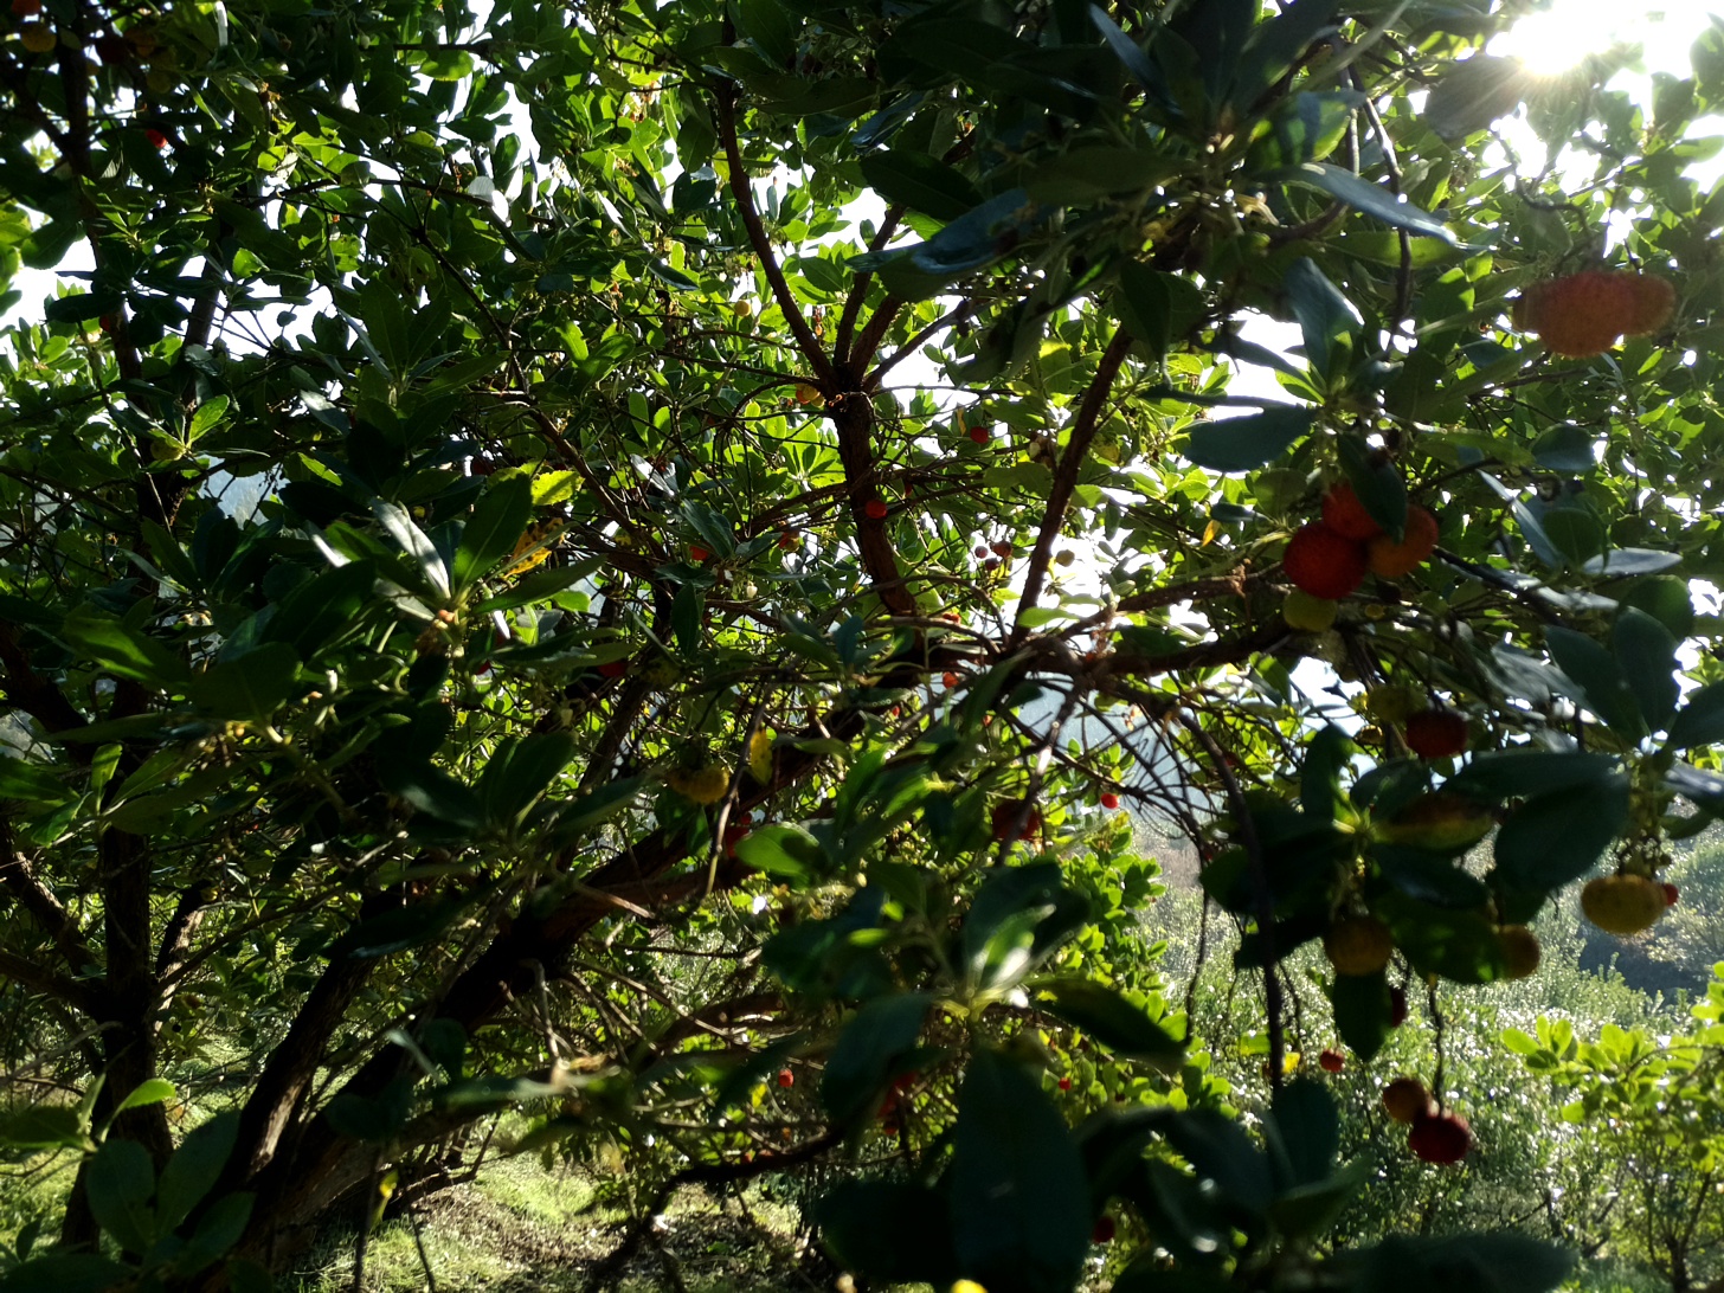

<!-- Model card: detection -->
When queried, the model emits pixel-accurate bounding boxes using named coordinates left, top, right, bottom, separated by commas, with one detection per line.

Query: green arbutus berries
left=1285, top=587, right=1337, bottom=638
left=1584, top=872, right=1667, bottom=937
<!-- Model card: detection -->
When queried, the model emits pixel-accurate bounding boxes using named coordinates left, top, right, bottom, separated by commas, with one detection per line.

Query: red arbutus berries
left=971, top=426, right=989, bottom=444
left=599, top=656, right=629, bottom=678
left=144, top=123, right=169, bottom=148
left=1407, top=706, right=1465, bottom=763
left=985, top=559, right=998, bottom=569
left=991, top=797, right=1038, bottom=839
left=975, top=546, right=987, bottom=558
left=865, top=500, right=887, bottom=518
left=942, top=670, right=963, bottom=690
left=1282, top=518, right=1365, bottom=598
left=777, top=1071, right=793, bottom=1088
left=1369, top=497, right=1437, bottom=579
left=1101, top=792, right=1119, bottom=808
left=1321, top=479, right=1375, bottom=537
left=796, top=389, right=809, bottom=404
left=688, top=541, right=711, bottom=560
left=1320, top=1048, right=1344, bottom=1073
left=1058, top=1077, right=1071, bottom=1091
left=997, top=541, right=1011, bottom=557
left=1407, top=1115, right=1470, bottom=1163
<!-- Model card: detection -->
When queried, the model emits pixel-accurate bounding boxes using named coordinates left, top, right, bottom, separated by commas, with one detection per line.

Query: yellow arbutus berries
left=1540, top=271, right=1622, bottom=358
left=1057, top=549, right=1076, bottom=567
left=688, top=765, right=729, bottom=805
left=734, top=300, right=751, bottom=315
left=802, top=386, right=821, bottom=401
left=1326, top=914, right=1392, bottom=974
left=17, top=22, right=58, bottom=53
left=1604, top=272, right=1676, bottom=334
left=812, top=395, right=824, bottom=407
left=1381, top=1080, right=1429, bottom=1121
left=1487, top=924, right=1540, bottom=977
